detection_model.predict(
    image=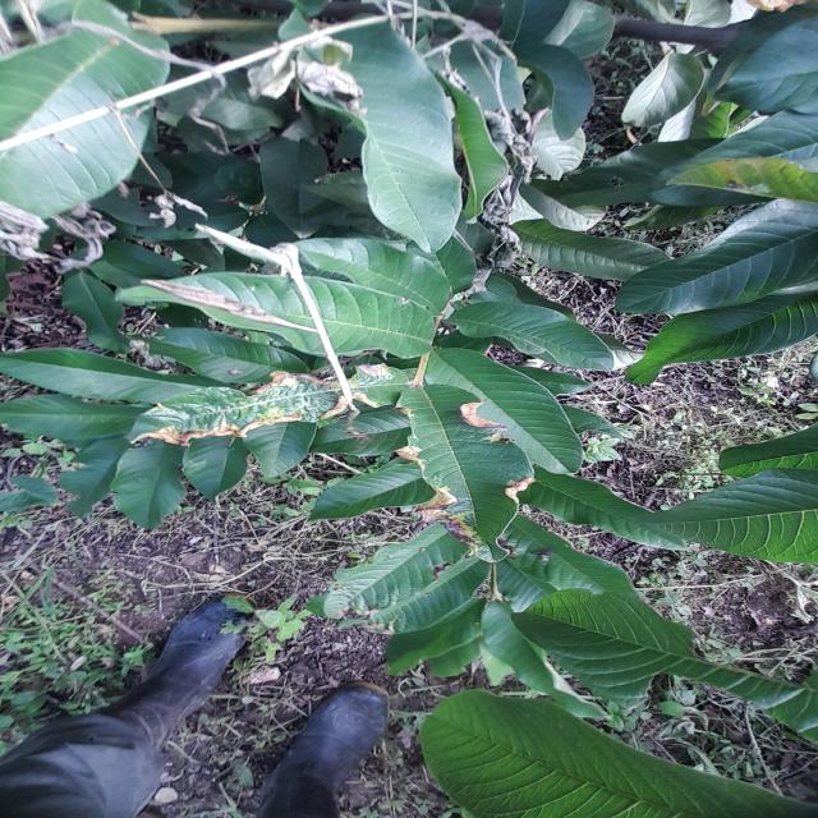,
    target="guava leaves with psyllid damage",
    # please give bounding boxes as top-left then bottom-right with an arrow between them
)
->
390,376 -> 552,566
106,380 -> 374,451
